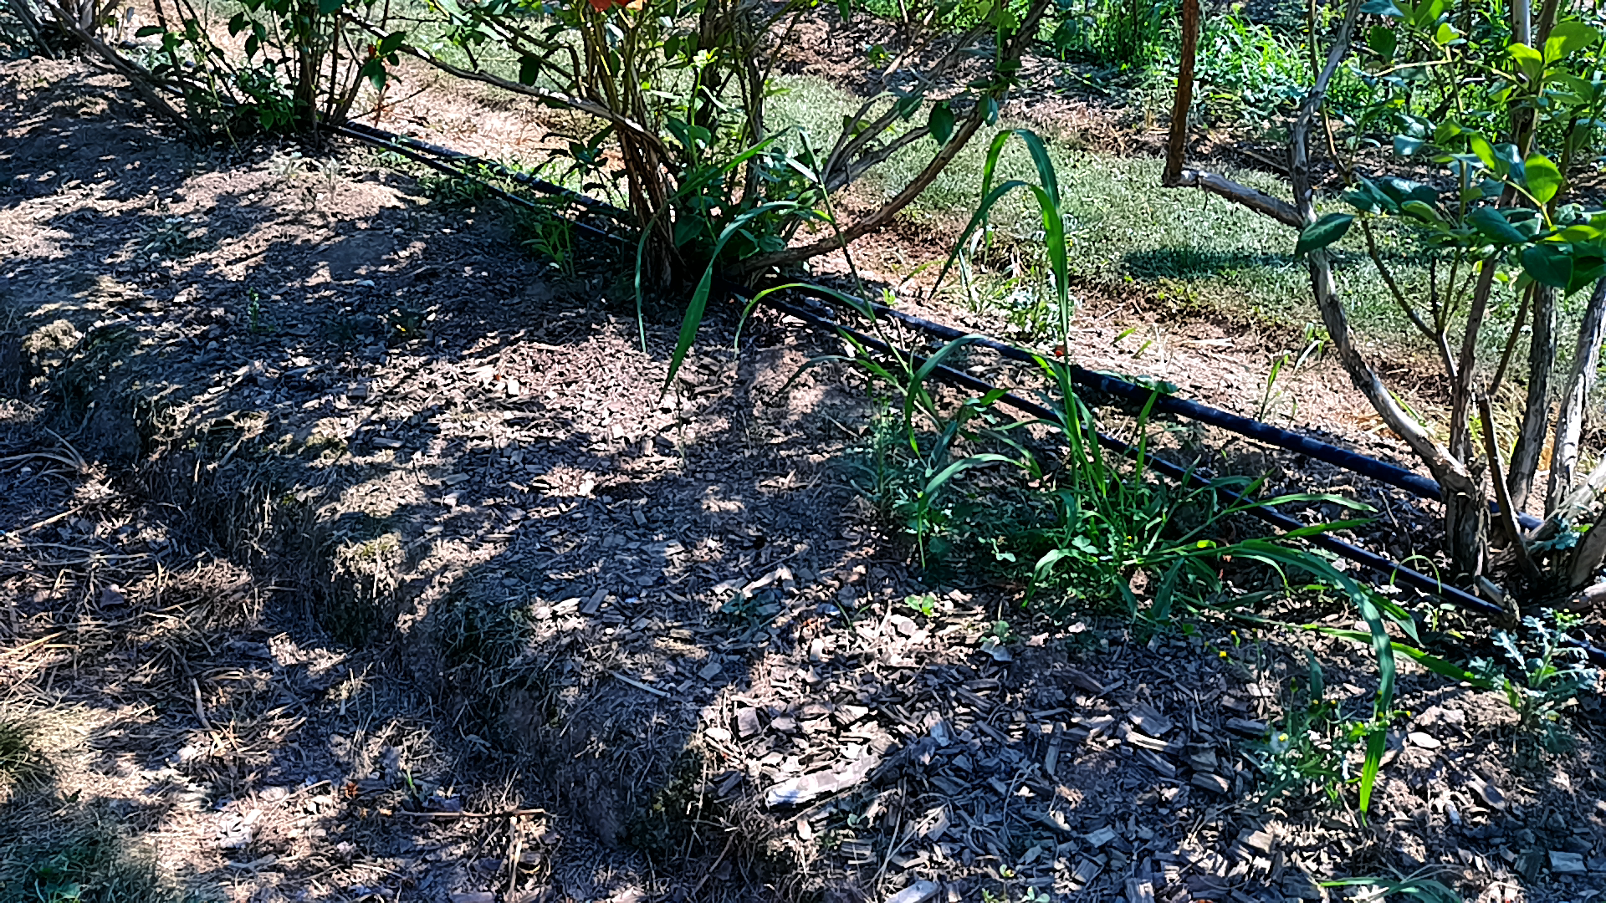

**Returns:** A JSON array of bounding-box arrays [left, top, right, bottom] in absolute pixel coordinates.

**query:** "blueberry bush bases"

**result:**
[[1295, 319, 1606, 694], [0, 1, 128, 70], [568, 132, 852, 380], [215, 56, 400, 225]]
